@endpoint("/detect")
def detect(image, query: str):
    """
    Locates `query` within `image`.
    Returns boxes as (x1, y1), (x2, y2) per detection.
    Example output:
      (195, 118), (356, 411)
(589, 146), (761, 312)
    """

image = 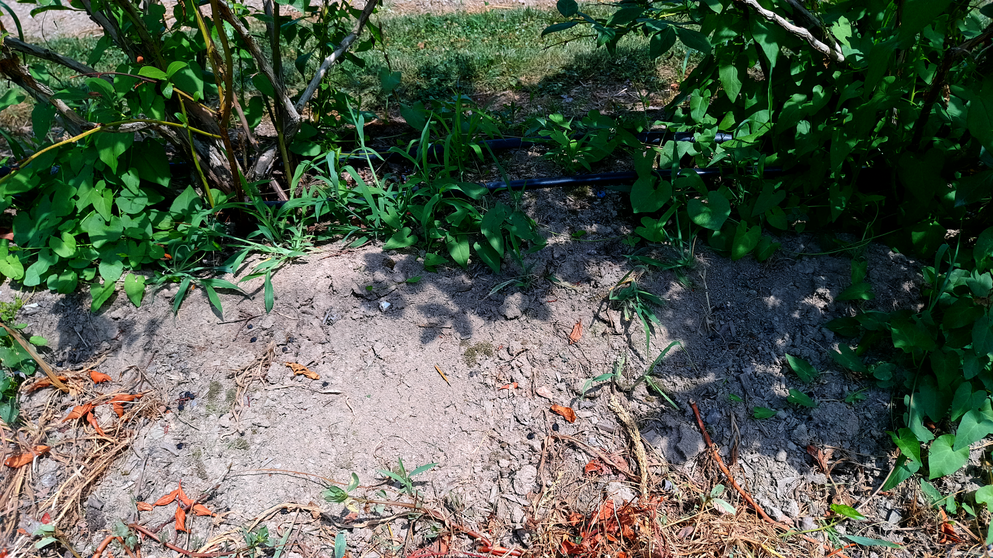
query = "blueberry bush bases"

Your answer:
(733, 63), (979, 269)
(72, 65), (355, 276)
